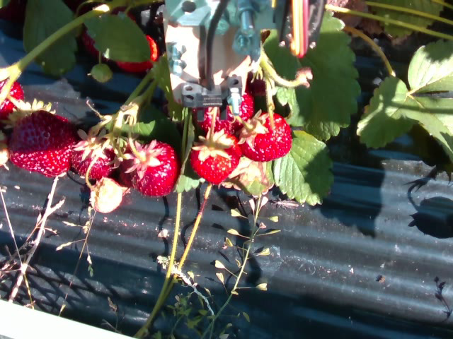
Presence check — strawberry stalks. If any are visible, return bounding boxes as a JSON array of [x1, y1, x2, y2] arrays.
[[206, 105, 225, 159], [127, 132, 149, 165]]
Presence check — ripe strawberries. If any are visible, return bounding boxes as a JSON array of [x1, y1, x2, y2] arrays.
[[0, 79, 23, 125], [72, 131, 121, 179], [222, 91, 256, 123], [244, 114, 296, 157], [193, 141, 242, 181], [113, 33, 161, 66], [8, 111, 76, 173], [130, 140, 183, 197]]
